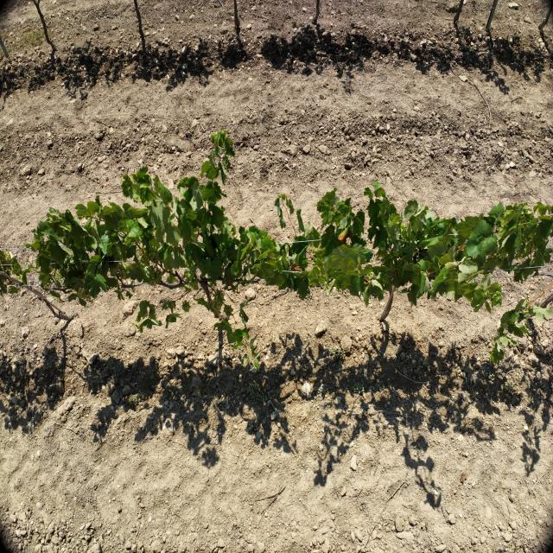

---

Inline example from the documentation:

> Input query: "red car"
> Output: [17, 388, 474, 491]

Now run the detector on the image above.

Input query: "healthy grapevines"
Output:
[308, 157, 553, 337]
[26, 147, 315, 353]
